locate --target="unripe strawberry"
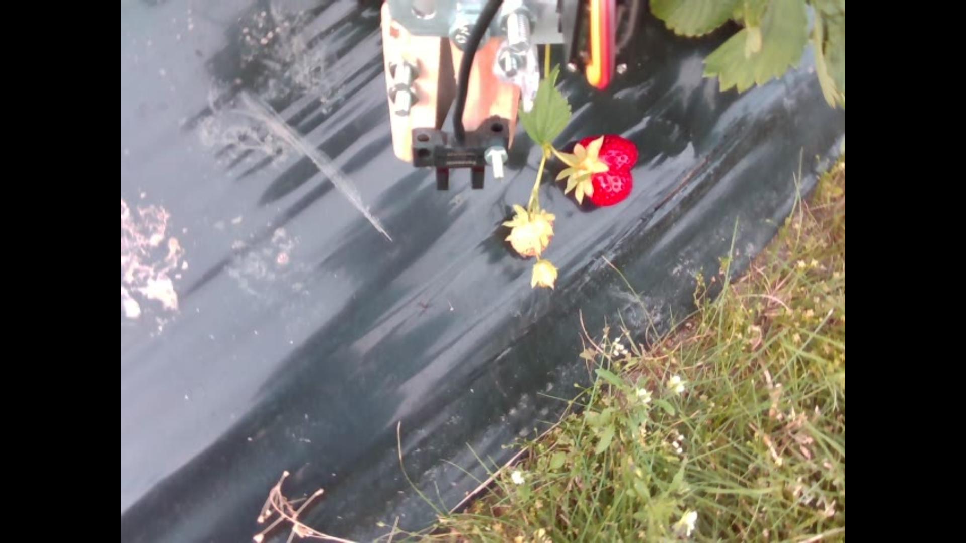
[498,213,561,256]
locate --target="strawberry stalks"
[548,145,587,183]
[528,242,554,274]
[520,178,544,218]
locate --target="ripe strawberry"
[567,134,641,207]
